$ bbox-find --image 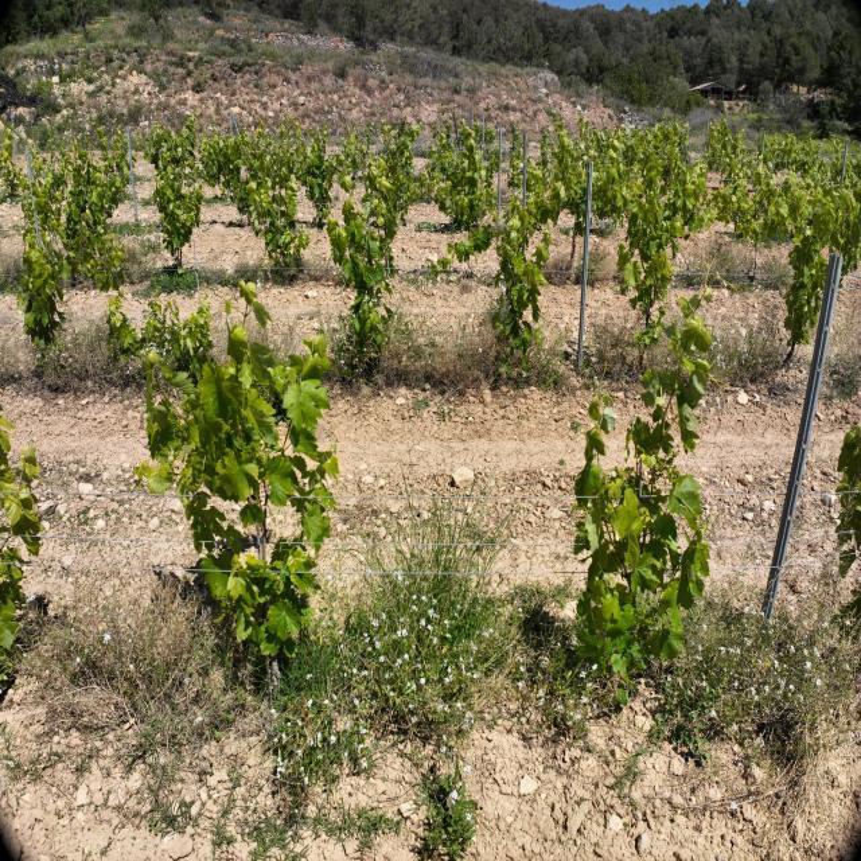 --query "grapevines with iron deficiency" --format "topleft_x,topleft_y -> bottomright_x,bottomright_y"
564,280 -> 739,702
127,273 -> 363,702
